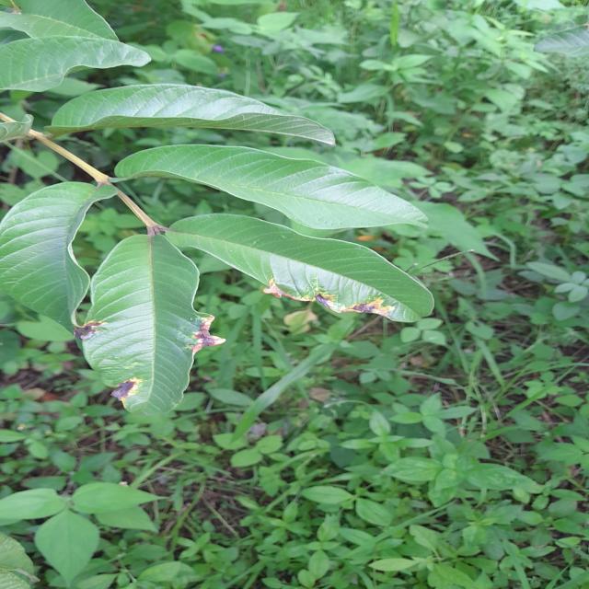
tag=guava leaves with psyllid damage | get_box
[74,233,224,435]
[156,208,467,325]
